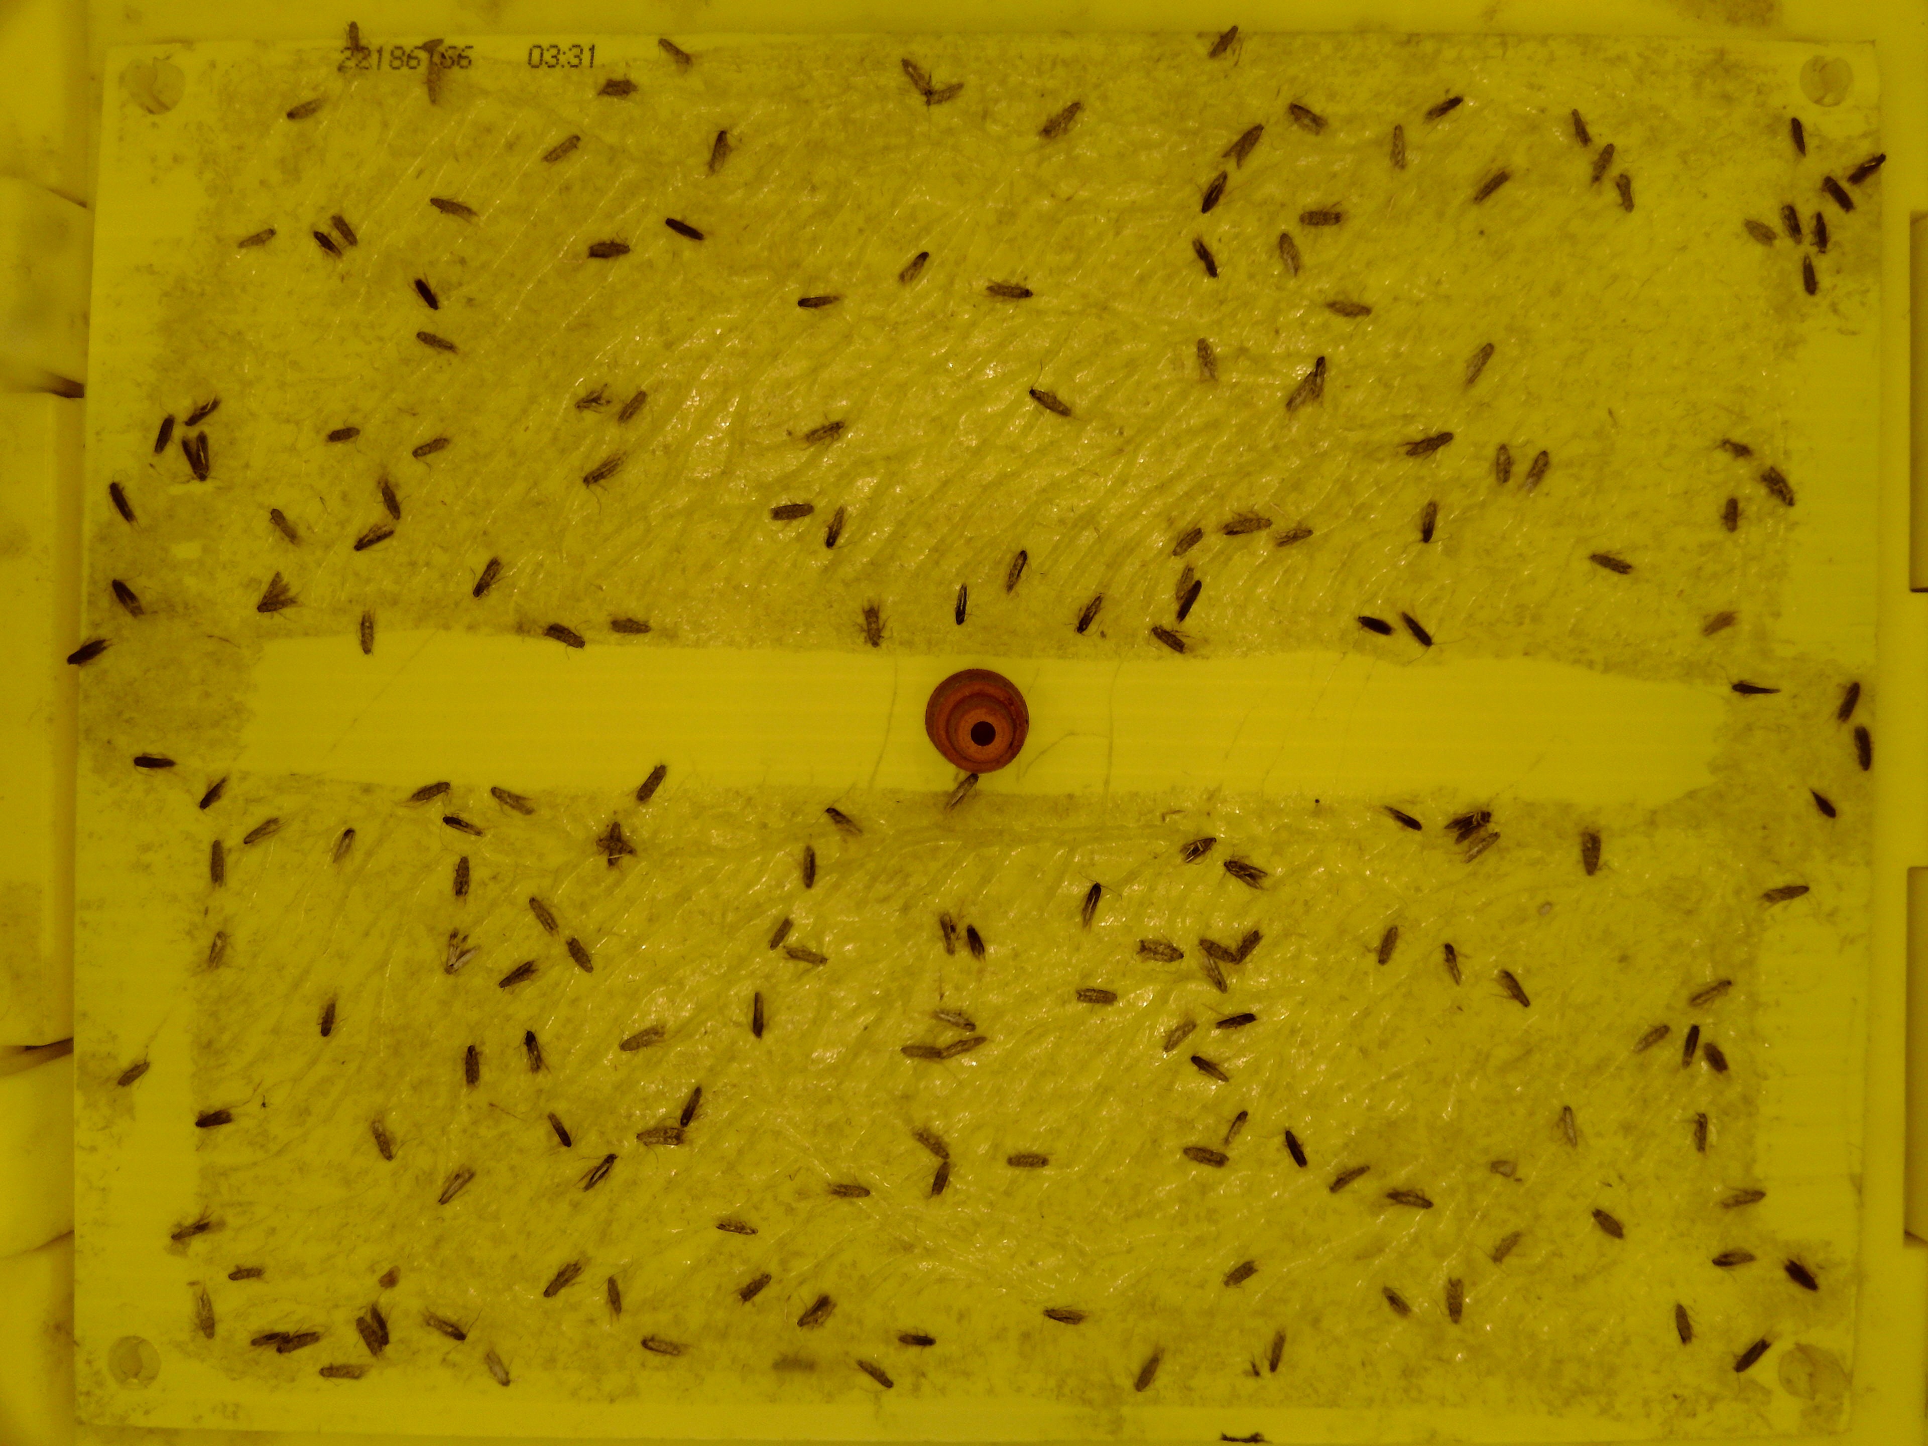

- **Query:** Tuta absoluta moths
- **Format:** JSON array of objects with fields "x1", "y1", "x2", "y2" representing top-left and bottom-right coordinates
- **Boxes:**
[
  {"x1": 1173, "y1": 1146, "x2": 1233, "y2": 1175},
  {"x1": 1854, "y1": 735, "x2": 1880, "y2": 784},
  {"x1": 1226, "y1": 120, "x2": 1264, "y2": 162},
  {"x1": 629, "y1": 1115, "x2": 690, "y2": 1148},
  {"x1": 446, "y1": 853, "x2": 477, "y2": 900},
  {"x1": 1189, "y1": 928, "x2": 1265, "y2": 963},
  {"x1": 202, "y1": 924, "x2": 231, "y2": 965},
  {"x1": 1128, "y1": 930, "x2": 1189, "y2": 970},
  {"x1": 1467, "y1": 169, "x2": 1519, "y2": 205},
  {"x1": 825, "y1": 503, "x2": 850, "y2": 551},
  {"x1": 414, "y1": 281, "x2": 445, "y2": 311},
  {"x1": 1401, "y1": 607, "x2": 1436, "y2": 647},
  {"x1": 1320, "y1": 294, "x2": 1375, "y2": 319},
  {"x1": 471, "y1": 553, "x2": 503, "y2": 600},
  {"x1": 1074, "y1": 594, "x2": 1107, "y2": 633},
  {"x1": 612, "y1": 389, "x2": 650, "y2": 424},
  {"x1": 1188, "y1": 1050, "x2": 1235, "y2": 1081},
  {"x1": 582, "y1": 454, "x2": 622, "y2": 487},
  {"x1": 1423, "y1": 498, "x2": 1440, "y2": 546},
  {"x1": 566, "y1": 934, "x2": 598, "y2": 975},
  {"x1": 268, "y1": 503, "x2": 302, "y2": 550},
  {"x1": 1795, "y1": 255, "x2": 1824, "y2": 295},
  {"x1": 325, "y1": 415, "x2": 361, "y2": 445},
  {"x1": 943, "y1": 771, "x2": 987, "y2": 806},
  {"x1": 1442, "y1": 806, "x2": 1494, "y2": 838},
  {"x1": 806, "y1": 407, "x2": 856, "y2": 451},
  {"x1": 545, "y1": 1111, "x2": 579, "y2": 1154},
  {"x1": 1683, "y1": 979, "x2": 1736, "y2": 1007},
  {"x1": 1267, "y1": 521, "x2": 1319, "y2": 555},
  {"x1": 1788, "y1": 116, "x2": 1814, "y2": 154},
  {"x1": 1004, "y1": 546, "x2": 1023, "y2": 588},
  {"x1": 901, "y1": 1037, "x2": 944, "y2": 1062},
  {"x1": 355, "y1": 1310, "x2": 394, "y2": 1351},
  {"x1": 765, "y1": 909, "x2": 797, "y2": 952},
  {"x1": 635, "y1": 1332, "x2": 689, "y2": 1361},
  {"x1": 1281, "y1": 348, "x2": 1334, "y2": 410},
  {"x1": 796, "y1": 291, "x2": 848, "y2": 314},
  {"x1": 459, "y1": 1040, "x2": 483, "y2": 1089},
  {"x1": 118, "y1": 1058, "x2": 152, "y2": 1088},
  {"x1": 611, "y1": 1023, "x2": 666, "y2": 1049},
  {"x1": 1133, "y1": 1344, "x2": 1163, "y2": 1397},
  {"x1": 1403, "y1": 424, "x2": 1457, "y2": 458},
  {"x1": 1678, "y1": 1021, "x2": 1701, "y2": 1076},
  {"x1": 650, "y1": 35, "x2": 698, "y2": 68},
  {"x1": 1221, "y1": 507, "x2": 1274, "y2": 538},
  {"x1": 828, "y1": 802, "x2": 857, "y2": 838},
  {"x1": 1149, "y1": 623, "x2": 1185, "y2": 652},
  {"x1": 187, "y1": 394, "x2": 221, "y2": 428},
  {"x1": 410, "y1": 430, "x2": 453, "y2": 459},
  {"x1": 929, "y1": 1153, "x2": 951, "y2": 1190},
  {"x1": 1214, "y1": 1008, "x2": 1263, "y2": 1028},
  {"x1": 1584, "y1": 545, "x2": 1640, "y2": 577},
  {"x1": 498, "y1": 959, "x2": 548, "y2": 993},
  {"x1": 933, "y1": 1003, "x2": 983, "y2": 1026},
  {"x1": 131, "y1": 751, "x2": 178, "y2": 770},
  {"x1": 275, "y1": 1324, "x2": 320, "y2": 1357},
  {"x1": 1221, "y1": 1258, "x2": 1262, "y2": 1284},
  {"x1": 1082, "y1": 877, "x2": 1107, "y2": 931},
  {"x1": 1839, "y1": 679, "x2": 1860, "y2": 726},
  {"x1": 1195, "y1": 235, "x2": 1221, "y2": 281},
  {"x1": 1715, "y1": 493, "x2": 1743, "y2": 537},
  {"x1": 369, "y1": 1117, "x2": 398, "y2": 1163},
  {"x1": 531, "y1": 894, "x2": 562, "y2": 931},
  {"x1": 1039, "y1": 102, "x2": 1084, "y2": 142},
  {"x1": 705, "y1": 128, "x2": 735, "y2": 167},
  {"x1": 517, "y1": 1023, "x2": 548, "y2": 1079},
  {"x1": 606, "y1": 611, "x2": 655, "y2": 641},
  {"x1": 938, "y1": 911, "x2": 961, "y2": 956},
  {"x1": 1495, "y1": 443, "x2": 1512, "y2": 482},
  {"x1": 1763, "y1": 468, "x2": 1803, "y2": 513},
  {"x1": 900, "y1": 56, "x2": 956, "y2": 104},
  {"x1": 1586, "y1": 1199, "x2": 1626, "y2": 1246},
  {"x1": 600, "y1": 1270, "x2": 627, "y2": 1313},
  {"x1": 229, "y1": 1259, "x2": 269, "y2": 1281},
  {"x1": 951, "y1": 1027, "x2": 985, "y2": 1054},
  {"x1": 1733, "y1": 1338, "x2": 1785, "y2": 1378},
  {"x1": 1592, "y1": 133, "x2": 1617, "y2": 189},
  {"x1": 1422, "y1": 93, "x2": 1463, "y2": 121},
  {"x1": 196, "y1": 777, "x2": 232, "y2": 810},
  {"x1": 734, "y1": 1267, "x2": 774, "y2": 1307},
  {"x1": 1274, "y1": 1125, "x2": 1309, "y2": 1165},
  {"x1": 1196, "y1": 326, "x2": 1225, "y2": 385},
  {"x1": 1447, "y1": 1271, "x2": 1467, "y2": 1327},
  {"x1": 427, "y1": 189, "x2": 485, "y2": 228},
  {"x1": 581, "y1": 1149, "x2": 620, "y2": 1190},
  {"x1": 862, "y1": 599, "x2": 891, "y2": 649},
  {"x1": 1384, "y1": 1279, "x2": 1418, "y2": 1316},
  {"x1": 415, "y1": 329, "x2": 467, "y2": 353},
  {"x1": 638, "y1": 758, "x2": 669, "y2": 806},
  {"x1": 901, "y1": 1325, "x2": 942, "y2": 1351},
  {"x1": 1039, "y1": 1300, "x2": 1099, "y2": 1326},
  {"x1": 531, "y1": 1258, "x2": 585, "y2": 1301},
  {"x1": 235, "y1": 227, "x2": 280, "y2": 255},
  {"x1": 282, "y1": 97, "x2": 321, "y2": 127},
  {"x1": 481, "y1": 1348, "x2": 512, "y2": 1391},
  {"x1": 1465, "y1": 835, "x2": 1503, "y2": 865},
  {"x1": 353, "y1": 530, "x2": 394, "y2": 557},
  {"x1": 176, "y1": 1219, "x2": 217, "y2": 1245},
  {"x1": 1386, "y1": 123, "x2": 1414, "y2": 169},
  {"x1": 258, "y1": 571, "x2": 291, "y2": 616},
  {"x1": 787, "y1": 946, "x2": 834, "y2": 969},
  {"x1": 1376, "y1": 920, "x2": 1403, "y2": 970},
  {"x1": 1175, "y1": 519, "x2": 1209, "y2": 546},
  {"x1": 1284, "y1": 97, "x2": 1333, "y2": 131},
  {"x1": 1627, "y1": 1014, "x2": 1674, "y2": 1061},
  {"x1": 1854, "y1": 153, "x2": 1888, "y2": 187},
  {"x1": 106, "y1": 474, "x2": 138, "y2": 522},
  {"x1": 1610, "y1": 171, "x2": 1639, "y2": 210},
  {"x1": 1709, "y1": 1249, "x2": 1758, "y2": 1270},
  {"x1": 208, "y1": 836, "x2": 228, "y2": 881},
  {"x1": 316, "y1": 1361, "x2": 374, "y2": 1380},
  {"x1": 439, "y1": 809, "x2": 483, "y2": 835},
  {"x1": 180, "y1": 438, "x2": 217, "y2": 483},
  {"x1": 1783, "y1": 1252, "x2": 1821, "y2": 1295},
  {"x1": 1389, "y1": 1179, "x2": 1432, "y2": 1207},
  {"x1": 1821, "y1": 177, "x2": 1853, "y2": 215},
  {"x1": 487, "y1": 777, "x2": 538, "y2": 814},
  {"x1": 540, "y1": 617, "x2": 587, "y2": 645},
  {"x1": 379, "y1": 468, "x2": 407, "y2": 532},
  {"x1": 1028, "y1": 380, "x2": 1076, "y2": 420},
  {"x1": 661, "y1": 212, "x2": 707, "y2": 251},
  {"x1": 1069, "y1": 986, "x2": 1118, "y2": 1008},
  {"x1": 1458, "y1": 343, "x2": 1500, "y2": 394},
  {"x1": 1812, "y1": 206, "x2": 1832, "y2": 255},
  {"x1": 1761, "y1": 876, "x2": 1817, "y2": 910},
  {"x1": 980, "y1": 279, "x2": 1039, "y2": 300},
  {"x1": 406, "y1": 782, "x2": 453, "y2": 802},
  {"x1": 858, "y1": 1354, "x2": 894, "y2": 1400},
  {"x1": 356, "y1": 604, "x2": 378, "y2": 658},
  {"x1": 1207, "y1": 24, "x2": 1239, "y2": 61},
  {"x1": 435, "y1": 1159, "x2": 478, "y2": 1204},
  {"x1": 1497, "y1": 972, "x2": 1535, "y2": 1009},
  {"x1": 1181, "y1": 832, "x2": 1221, "y2": 860},
  {"x1": 1691, "y1": 1111, "x2": 1720, "y2": 1153},
  {"x1": 1693, "y1": 610, "x2": 1738, "y2": 640},
  {"x1": 334, "y1": 210, "x2": 362, "y2": 249},
  {"x1": 1784, "y1": 197, "x2": 1799, "y2": 235},
  {"x1": 1175, "y1": 561, "x2": 1197, "y2": 618},
  {"x1": 1328, "y1": 1149, "x2": 1380, "y2": 1196},
  {"x1": 1578, "y1": 835, "x2": 1610, "y2": 881},
  {"x1": 542, "y1": 128, "x2": 577, "y2": 170},
  {"x1": 1491, "y1": 1228, "x2": 1521, "y2": 1266},
  {"x1": 1357, "y1": 611, "x2": 1391, "y2": 634},
  {"x1": 956, "y1": 580, "x2": 972, "y2": 630},
  {"x1": 422, "y1": 1303, "x2": 475, "y2": 1344},
  {"x1": 1520, "y1": 443, "x2": 1549, "y2": 493},
  {"x1": 1382, "y1": 803, "x2": 1432, "y2": 837},
  {"x1": 1672, "y1": 1300, "x2": 1694, "y2": 1347},
  {"x1": 68, "y1": 633, "x2": 108, "y2": 669},
  {"x1": 1203, "y1": 963, "x2": 1230, "y2": 997},
  {"x1": 747, "y1": 984, "x2": 772, "y2": 1041},
  {"x1": 1268, "y1": 1327, "x2": 1290, "y2": 1379},
  {"x1": 193, "y1": 1110, "x2": 234, "y2": 1132},
  {"x1": 321, "y1": 997, "x2": 343, "y2": 1038},
  {"x1": 1158, "y1": 1018, "x2": 1196, "y2": 1056},
  {"x1": 146, "y1": 407, "x2": 177, "y2": 454},
  {"x1": 1716, "y1": 1184, "x2": 1767, "y2": 1212},
  {"x1": 1220, "y1": 858, "x2": 1273, "y2": 885},
  {"x1": 606, "y1": 813, "x2": 622, "y2": 871},
  {"x1": 1294, "y1": 205, "x2": 1348, "y2": 224},
  {"x1": 719, "y1": 1217, "x2": 761, "y2": 1238},
  {"x1": 1701, "y1": 1033, "x2": 1733, "y2": 1076},
  {"x1": 1439, "y1": 941, "x2": 1471, "y2": 985},
  {"x1": 1219, "y1": 1110, "x2": 1250, "y2": 1153},
  {"x1": 1273, "y1": 225, "x2": 1305, "y2": 269},
  {"x1": 240, "y1": 811, "x2": 295, "y2": 848},
  {"x1": 582, "y1": 238, "x2": 636, "y2": 258},
  {"x1": 794, "y1": 1292, "x2": 831, "y2": 1329},
  {"x1": 107, "y1": 577, "x2": 147, "y2": 619},
  {"x1": 1571, "y1": 109, "x2": 1594, "y2": 146},
  {"x1": 310, "y1": 231, "x2": 339, "y2": 261},
  {"x1": 823, "y1": 1174, "x2": 875, "y2": 1196},
  {"x1": 1201, "y1": 166, "x2": 1227, "y2": 217},
  {"x1": 1004, "y1": 1147, "x2": 1051, "y2": 1169},
  {"x1": 192, "y1": 1284, "x2": 216, "y2": 1342},
  {"x1": 965, "y1": 917, "x2": 986, "y2": 960},
  {"x1": 1743, "y1": 217, "x2": 1784, "y2": 247},
  {"x1": 798, "y1": 843, "x2": 823, "y2": 885},
  {"x1": 336, "y1": 826, "x2": 354, "y2": 871},
  {"x1": 764, "y1": 499, "x2": 817, "y2": 523},
  {"x1": 341, "y1": 20, "x2": 361, "y2": 50},
  {"x1": 896, "y1": 247, "x2": 929, "y2": 291}
]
